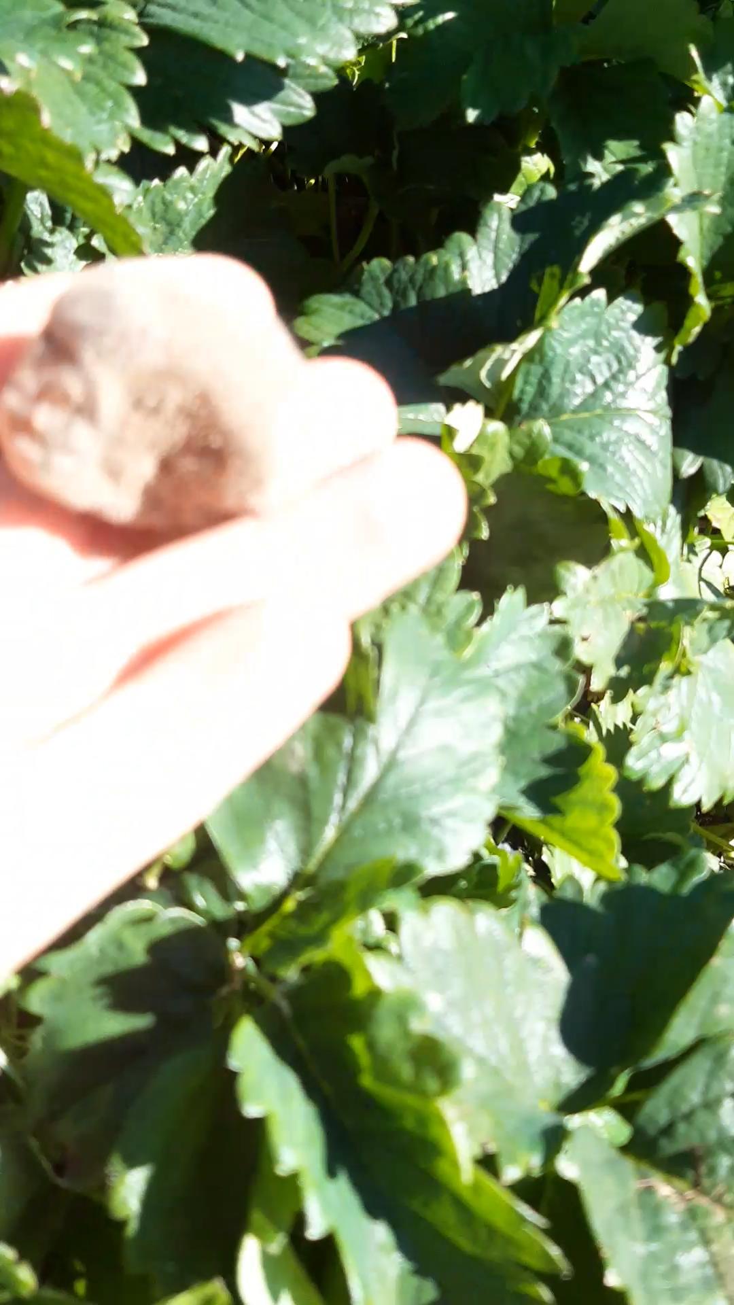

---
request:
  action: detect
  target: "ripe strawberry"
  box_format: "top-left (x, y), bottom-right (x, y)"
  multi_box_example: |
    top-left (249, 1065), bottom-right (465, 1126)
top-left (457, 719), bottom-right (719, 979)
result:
top-left (6, 272), bottom-right (277, 540)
